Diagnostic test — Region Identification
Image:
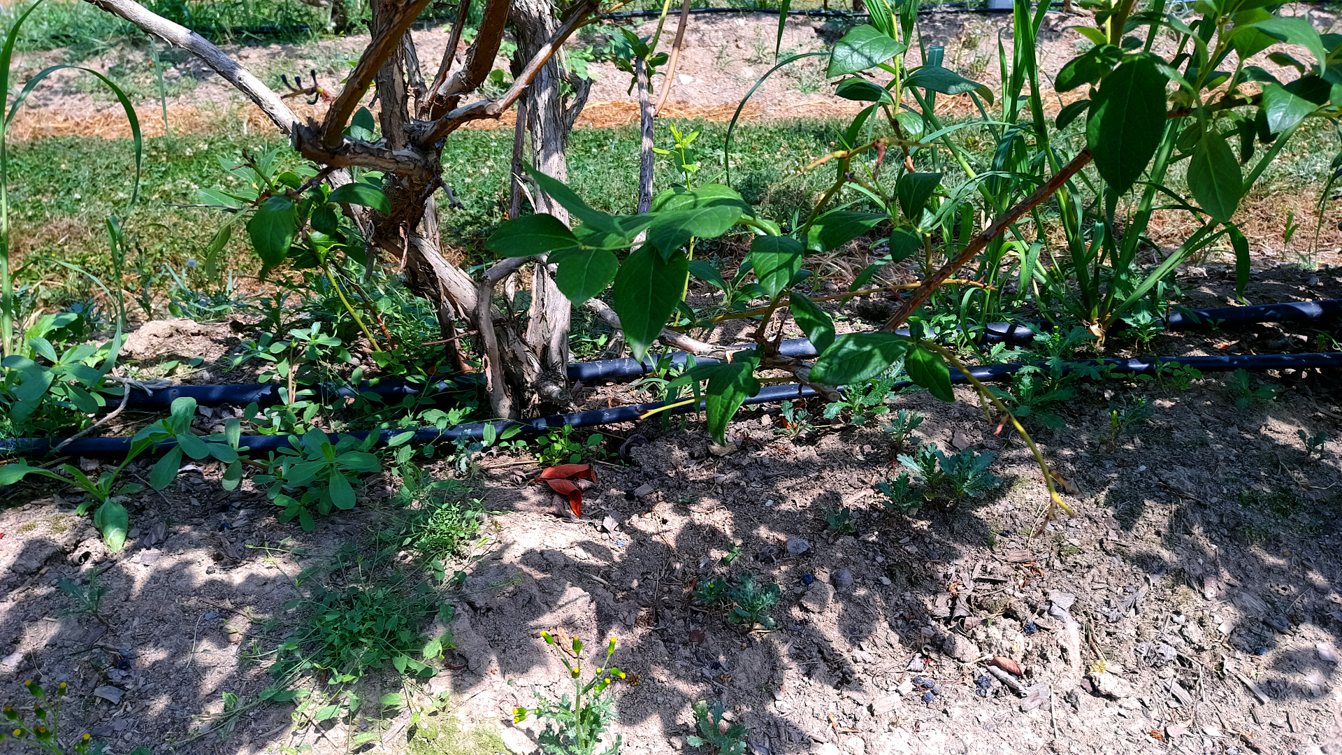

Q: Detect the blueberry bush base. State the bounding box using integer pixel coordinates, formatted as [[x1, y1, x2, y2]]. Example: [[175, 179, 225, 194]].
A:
[[311, 203, 656, 496]]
